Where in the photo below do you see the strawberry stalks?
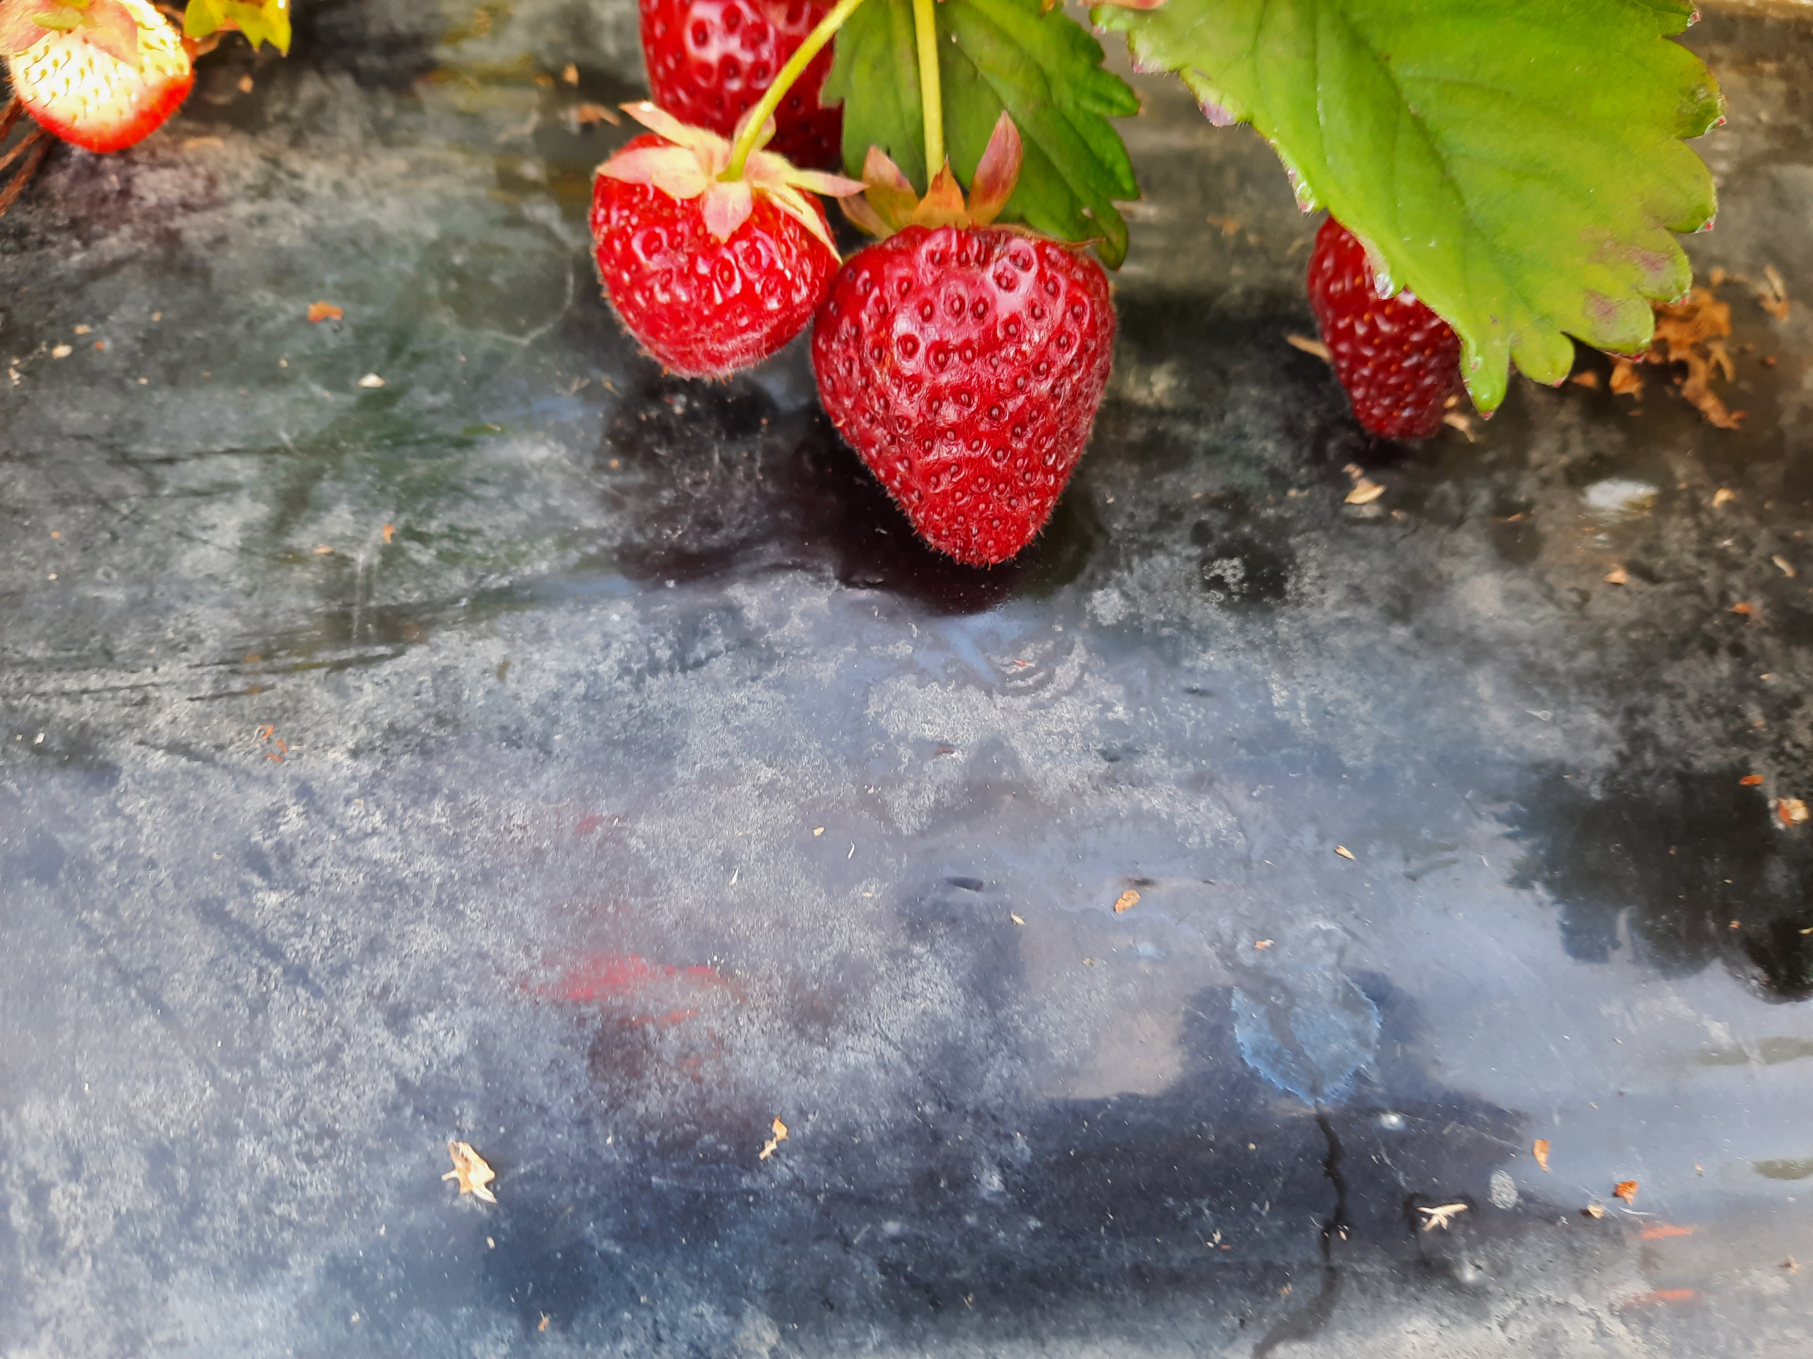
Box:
[713,7,865,202]
[910,8,968,279]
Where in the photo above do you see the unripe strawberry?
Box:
[16,0,192,155]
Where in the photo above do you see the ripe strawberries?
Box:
[649,0,846,142]
[825,237,1112,564]
[1276,175,1494,431]
[579,135,810,352]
